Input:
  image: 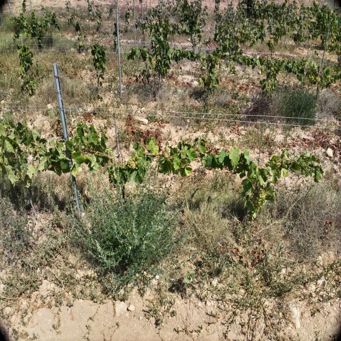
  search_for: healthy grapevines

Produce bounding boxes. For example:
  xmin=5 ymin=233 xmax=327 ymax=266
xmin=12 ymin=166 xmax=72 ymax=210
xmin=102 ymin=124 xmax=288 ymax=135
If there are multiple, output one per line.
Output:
xmin=43 ymin=123 xmax=202 ymax=223
xmin=198 ymin=135 xmax=326 ymax=229
xmin=0 ymin=114 xmax=47 ymax=217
